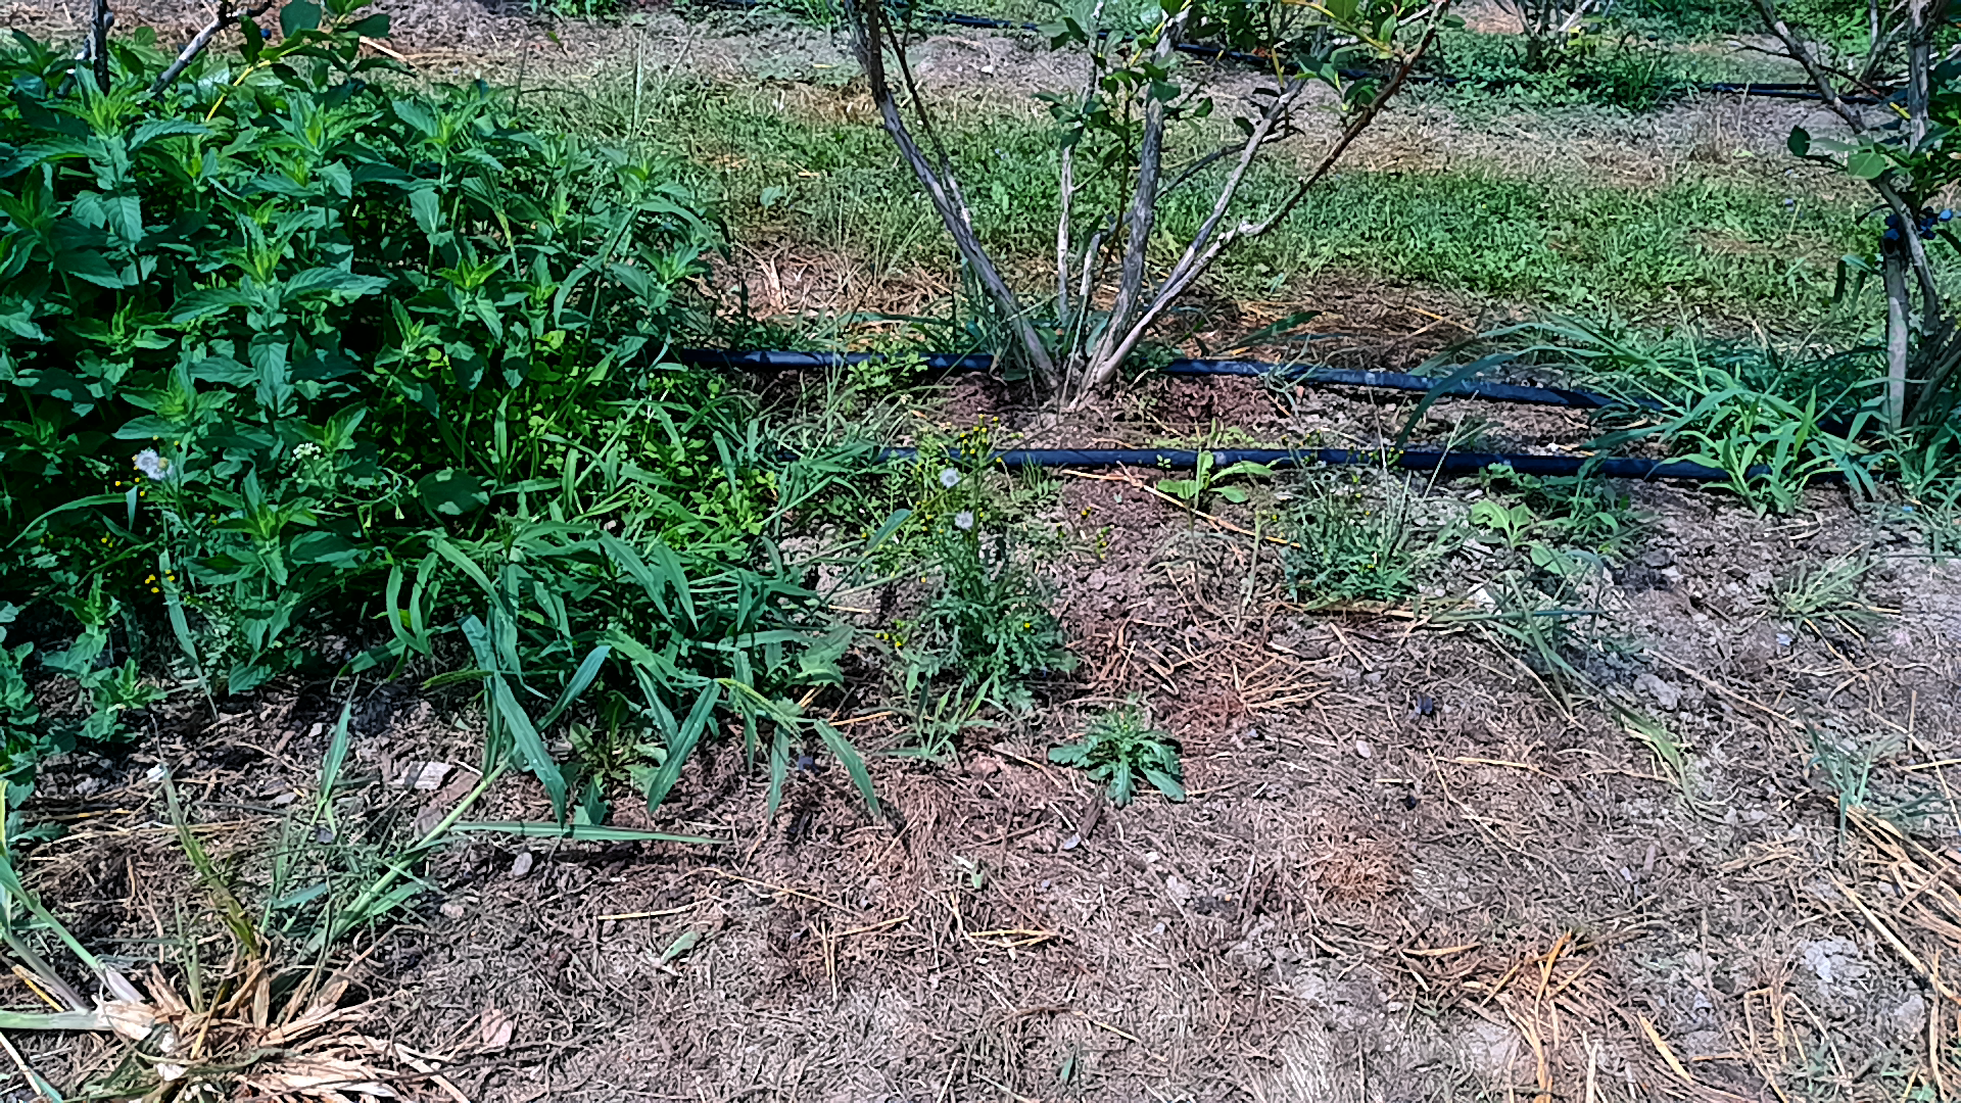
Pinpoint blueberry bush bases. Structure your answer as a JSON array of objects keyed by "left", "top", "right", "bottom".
[
  {"left": 1842, "top": 273, "right": 1960, "bottom": 501},
  {"left": 3, "top": 7, "right": 265, "bottom": 336},
  {"left": 1776, "top": 18, "right": 1914, "bottom": 123},
  {"left": 878, "top": 172, "right": 1279, "bottom": 472},
  {"left": 1488, "top": 12, "right": 1601, "bottom": 88}
]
